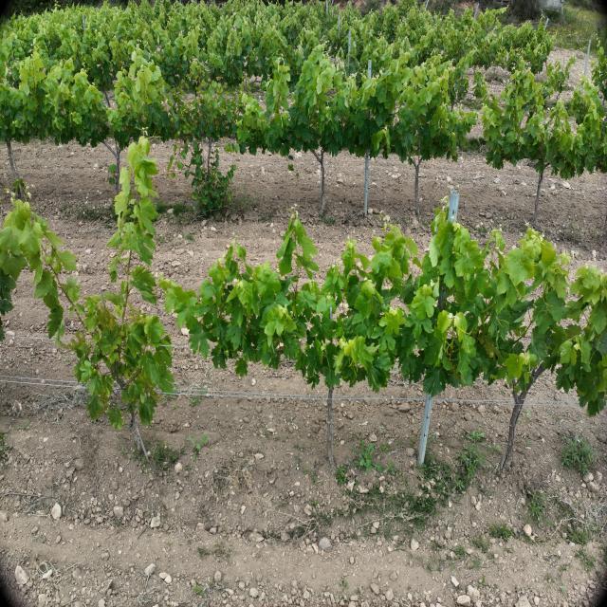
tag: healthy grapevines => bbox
[181,215,424,478]
[417,213,607,491]
[0,136,182,477]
